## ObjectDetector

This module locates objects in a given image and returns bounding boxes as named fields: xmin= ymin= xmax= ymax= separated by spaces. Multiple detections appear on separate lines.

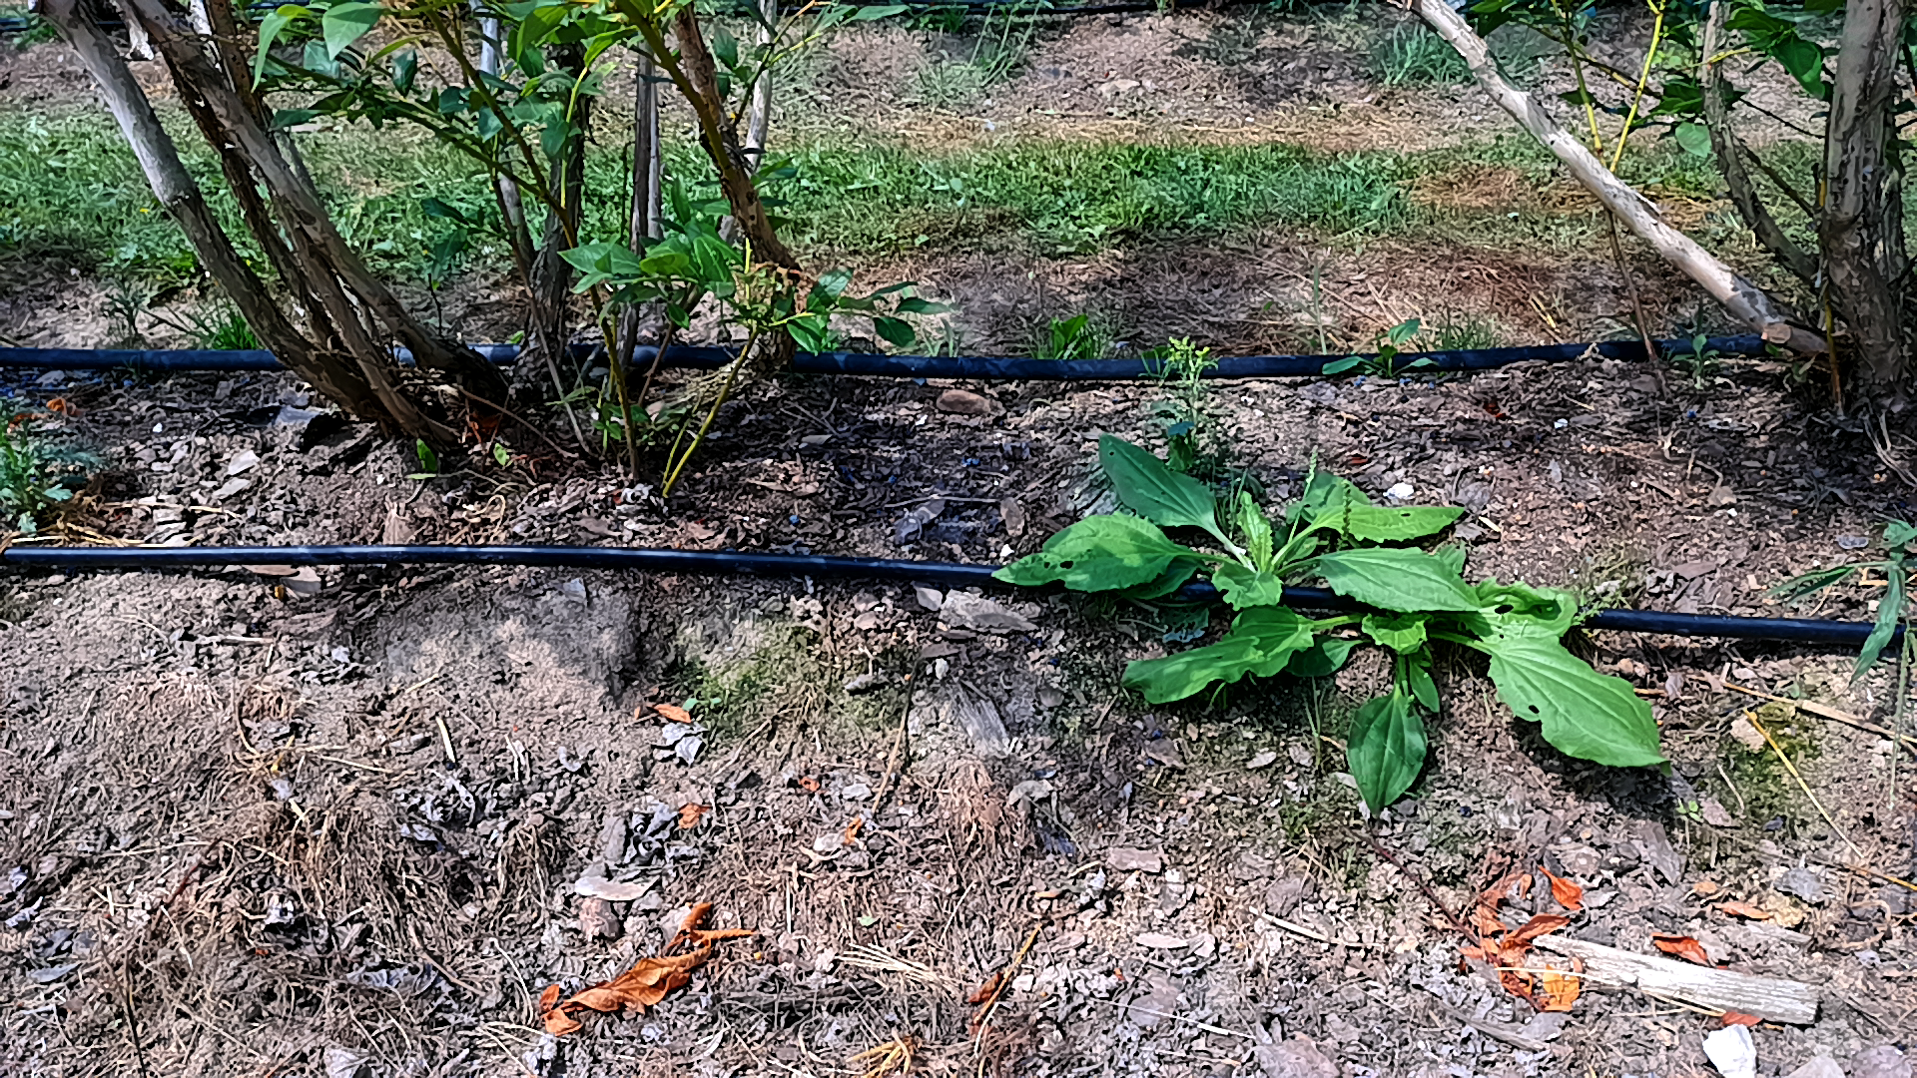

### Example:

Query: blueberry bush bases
xmin=1659 ymin=145 xmax=1917 ymax=472
xmin=161 ymin=164 xmax=782 ymax=556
